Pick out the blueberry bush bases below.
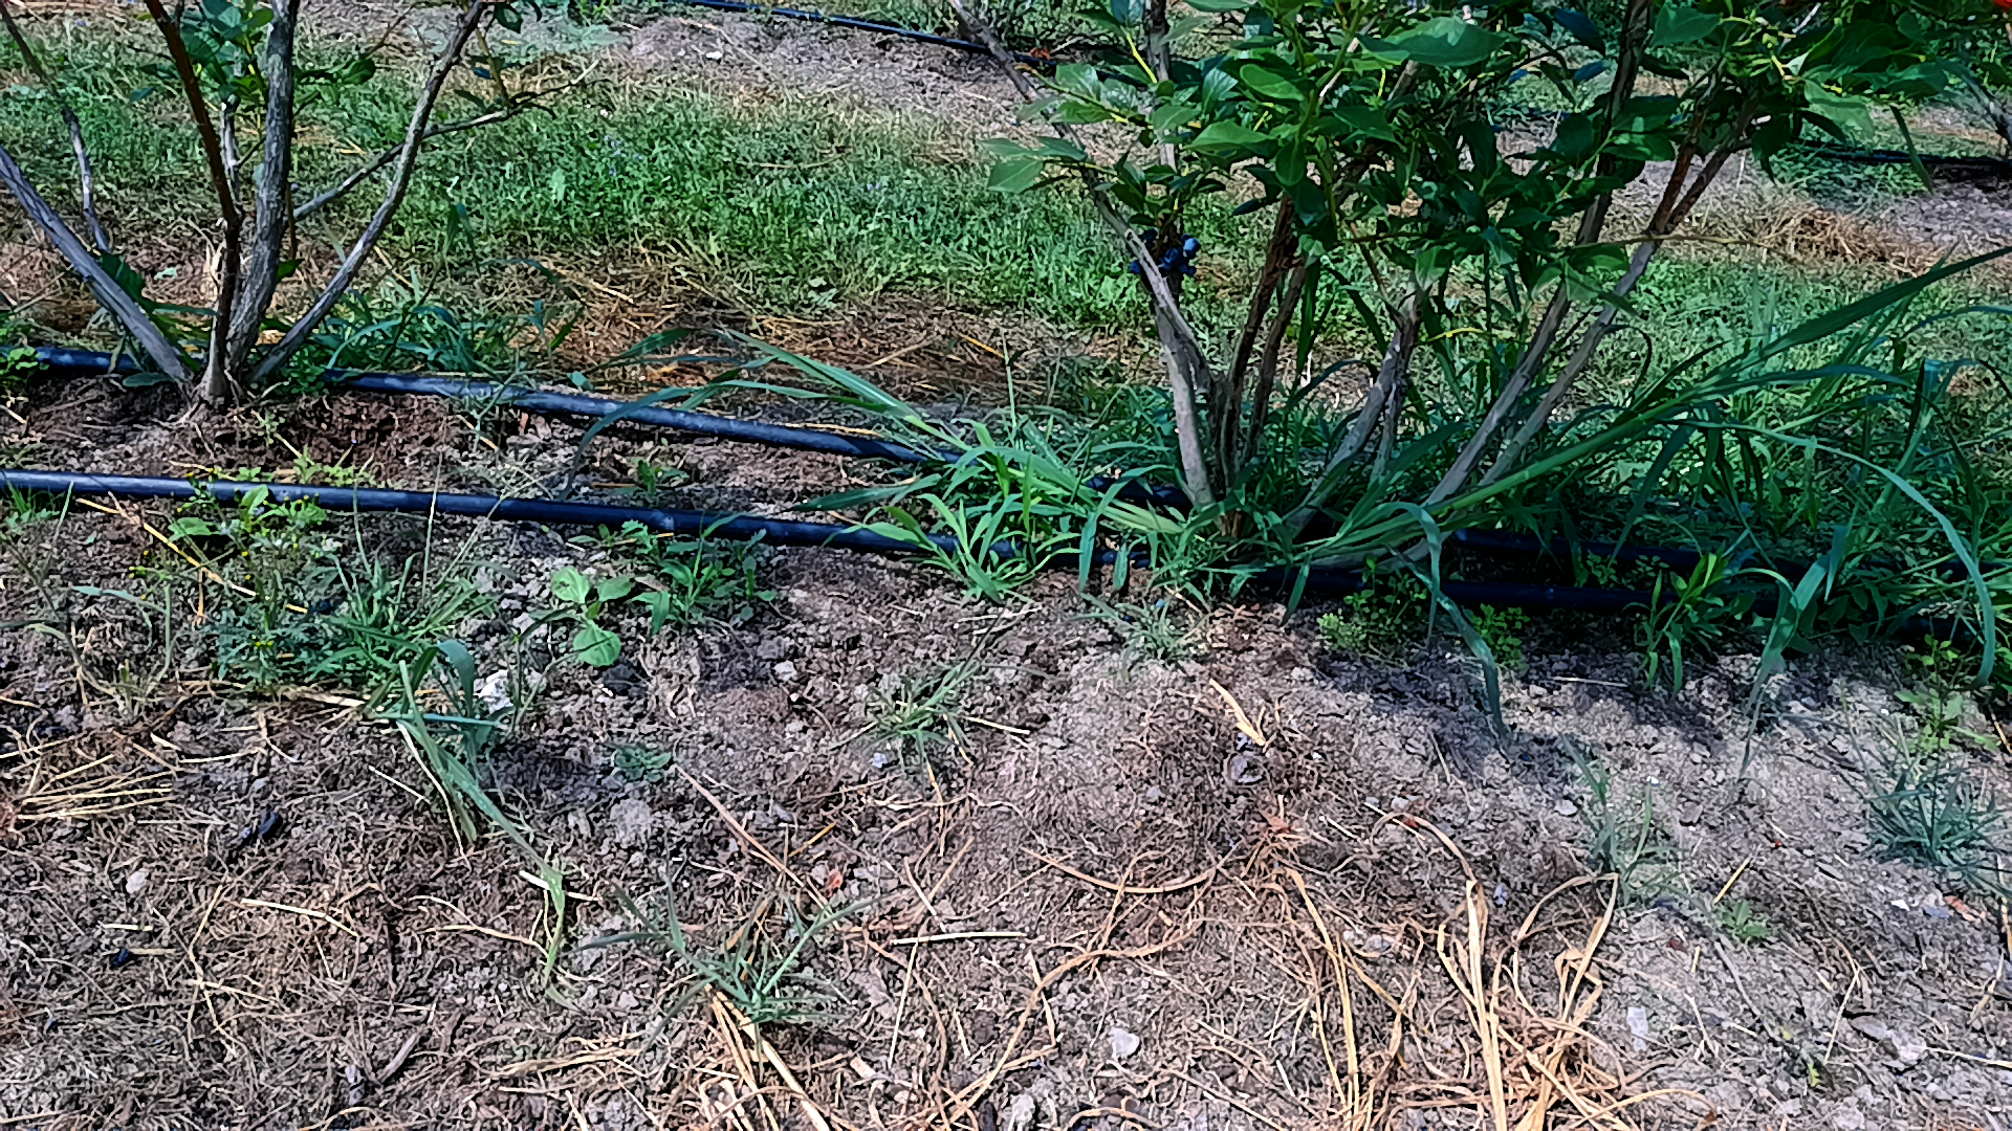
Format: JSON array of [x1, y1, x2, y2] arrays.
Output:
[[1113, 327, 1610, 646], [14, 178, 427, 495]]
